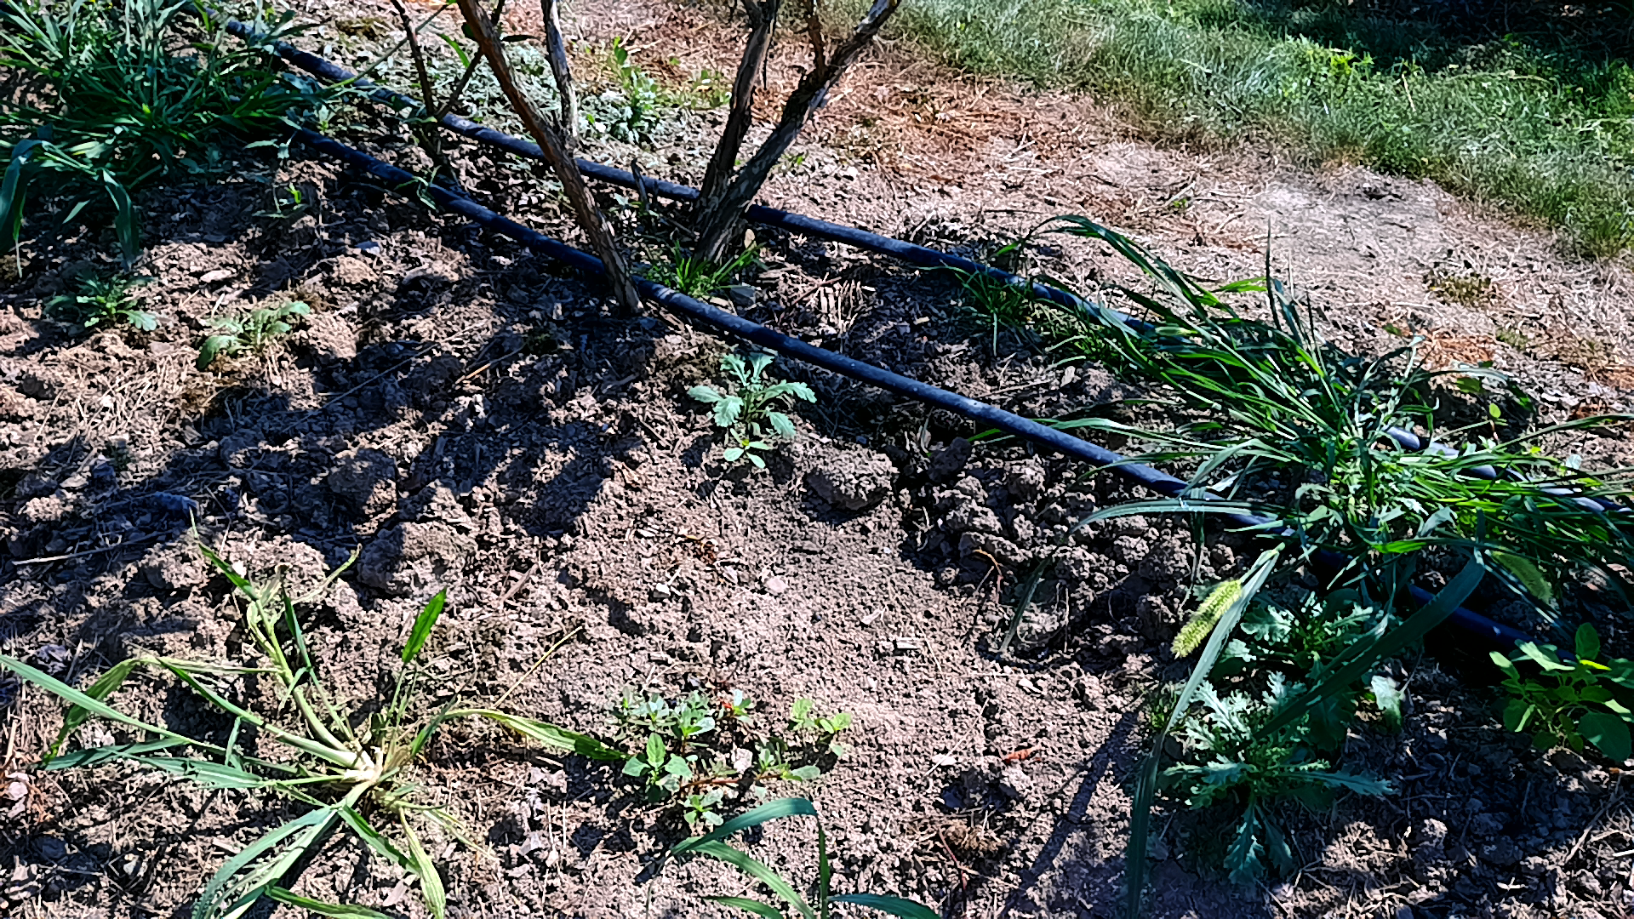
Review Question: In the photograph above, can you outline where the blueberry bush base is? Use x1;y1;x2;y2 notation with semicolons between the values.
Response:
456;93;828;421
